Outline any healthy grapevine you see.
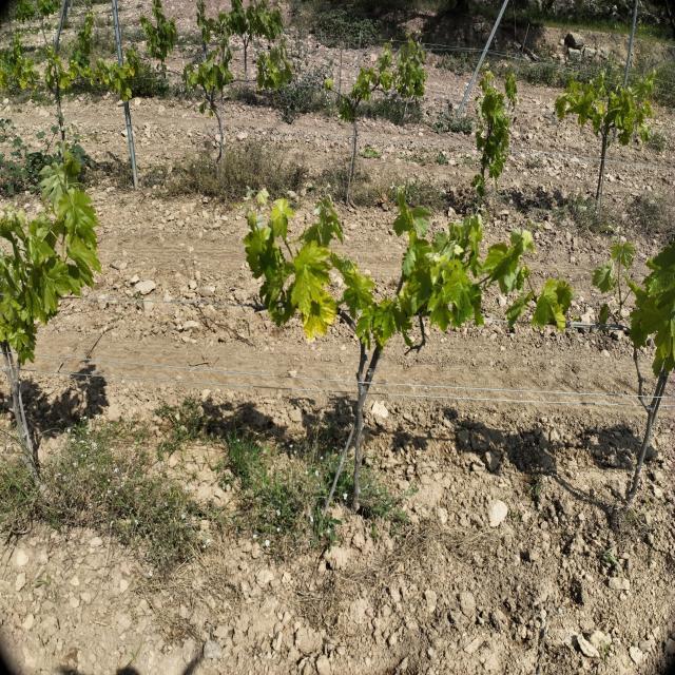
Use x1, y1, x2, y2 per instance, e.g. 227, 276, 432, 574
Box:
589, 211, 674, 523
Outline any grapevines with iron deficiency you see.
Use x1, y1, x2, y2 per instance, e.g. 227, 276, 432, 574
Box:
237, 189, 576, 526
0, 133, 105, 488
